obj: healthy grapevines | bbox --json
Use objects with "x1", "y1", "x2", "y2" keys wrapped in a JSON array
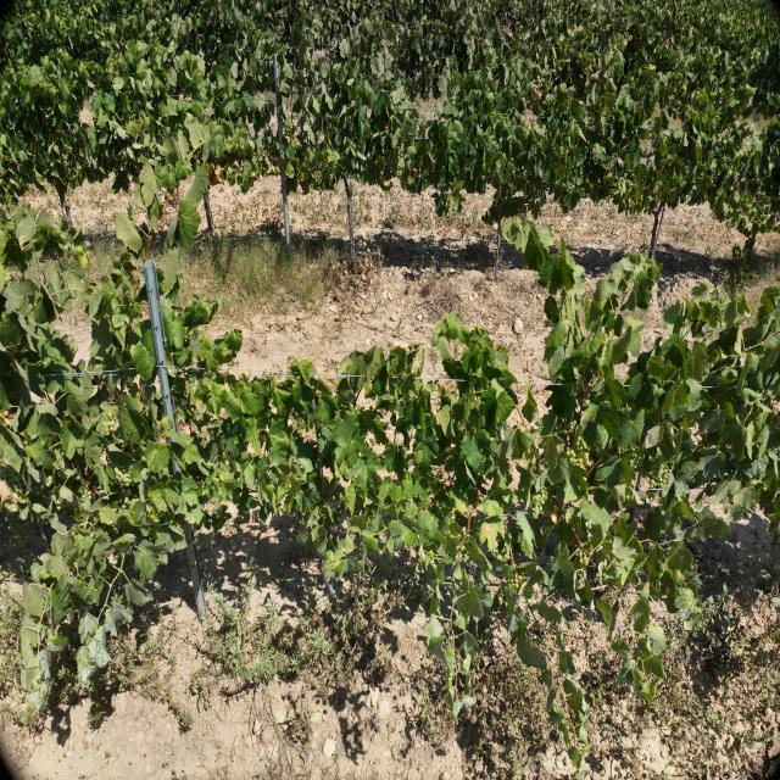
[
  {"x1": 0, "y1": 232, "x2": 306, "y2": 729},
  {"x1": 311, "y1": 256, "x2": 780, "y2": 756}
]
